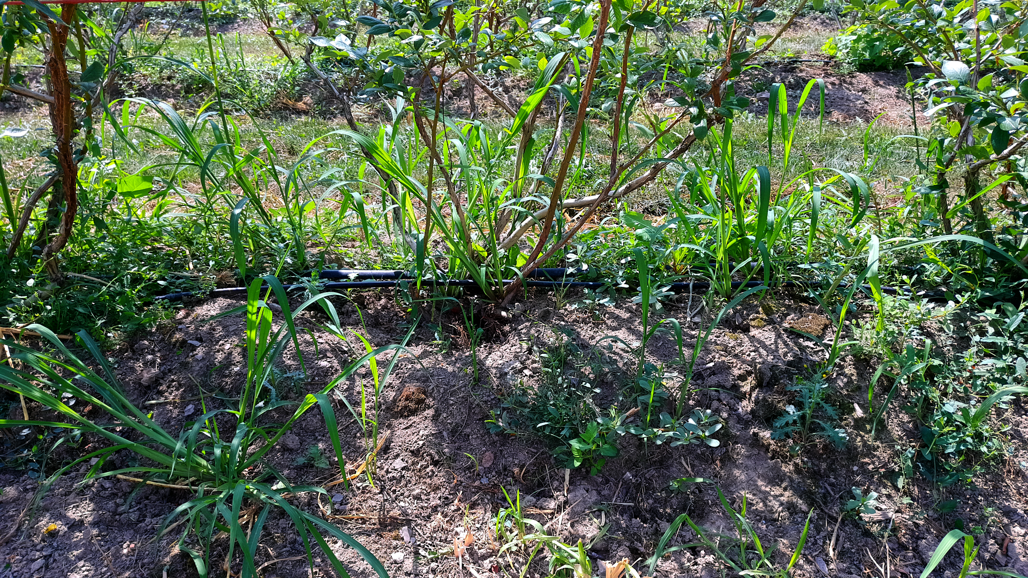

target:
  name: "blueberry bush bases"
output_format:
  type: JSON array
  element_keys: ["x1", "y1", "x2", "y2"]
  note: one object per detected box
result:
[
  {"x1": 929, "y1": 165, "x2": 1027, "y2": 343},
  {"x1": 4, "y1": 143, "x2": 125, "y2": 364},
  {"x1": 376, "y1": 186, "x2": 614, "y2": 348}
]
